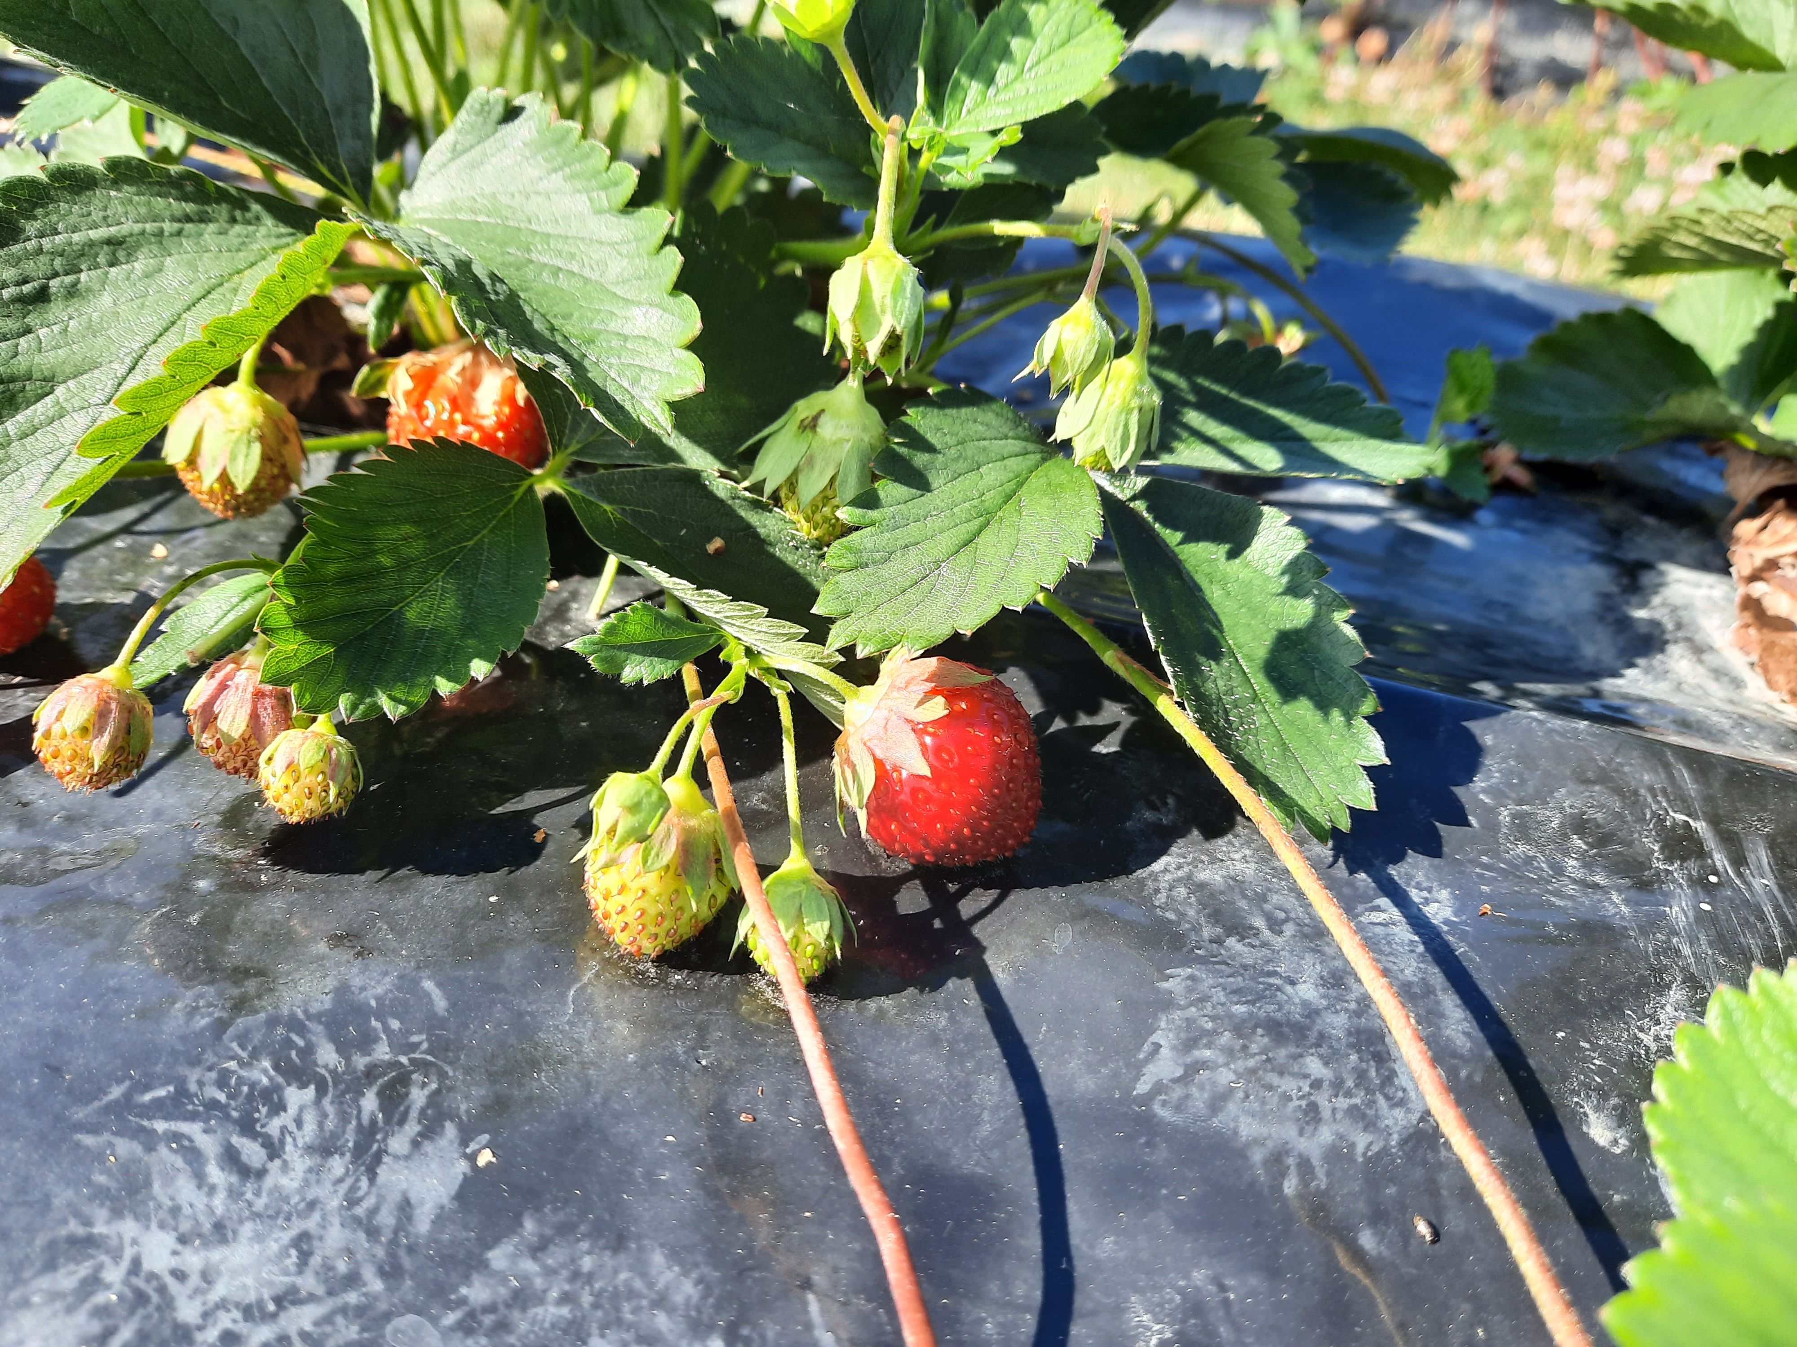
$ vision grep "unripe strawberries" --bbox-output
[157,384,296,513]
[584,786,730,956]
[36,669,150,791]
[758,879,839,980]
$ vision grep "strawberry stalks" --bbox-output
[748,650,879,741]
[100,591,177,695]
[673,697,725,813]
[226,306,276,417]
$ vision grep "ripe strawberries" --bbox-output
[384,343,544,506]
[836,675,1056,877]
